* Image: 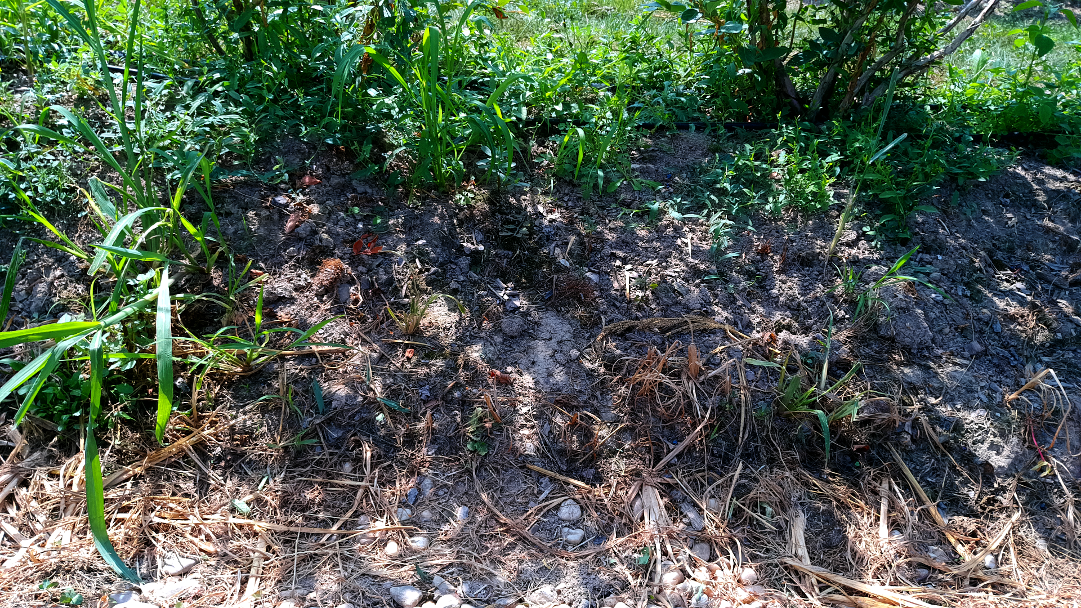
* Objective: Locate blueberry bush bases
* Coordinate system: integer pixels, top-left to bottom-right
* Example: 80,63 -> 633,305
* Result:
706,24 -> 966,180
180,4 -> 457,132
